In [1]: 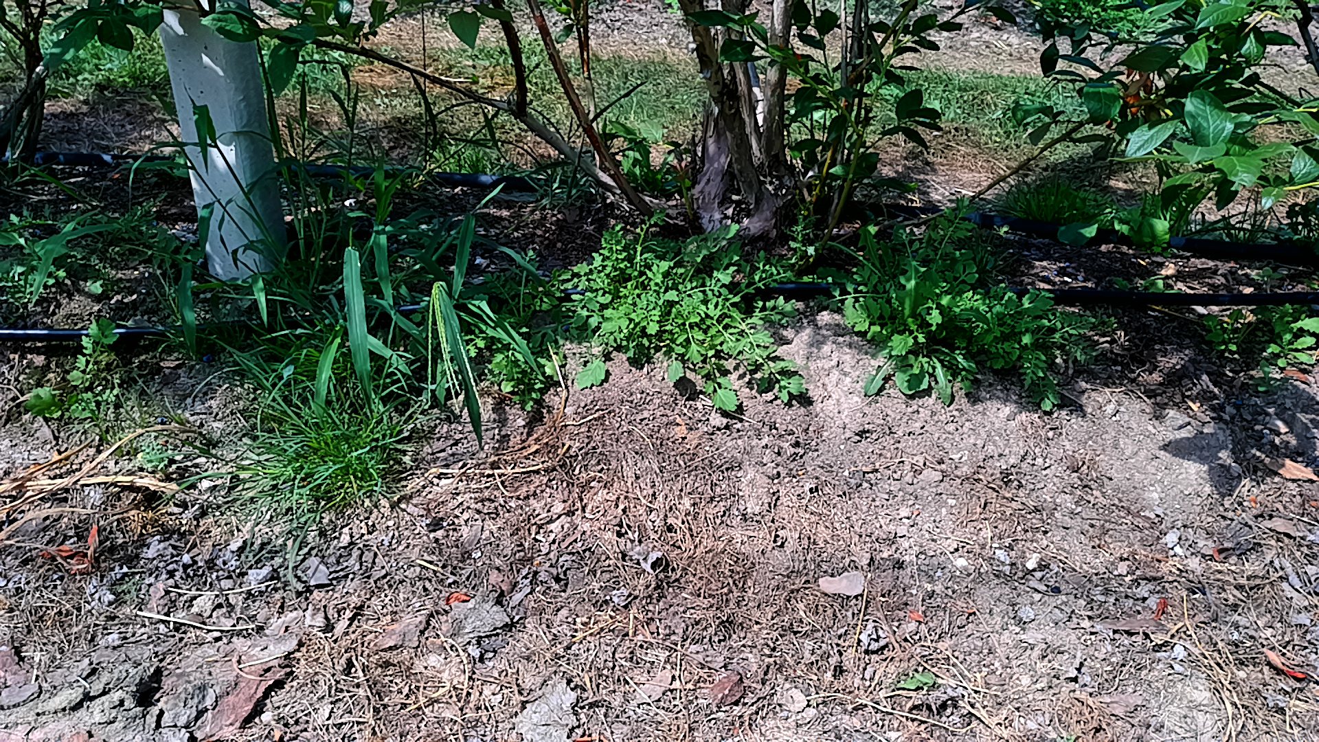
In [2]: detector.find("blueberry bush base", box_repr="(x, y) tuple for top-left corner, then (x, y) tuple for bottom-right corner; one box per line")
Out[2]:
(529, 64), (897, 324)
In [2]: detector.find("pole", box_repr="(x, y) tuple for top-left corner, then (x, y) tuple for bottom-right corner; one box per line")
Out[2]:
(157, 29), (300, 294)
